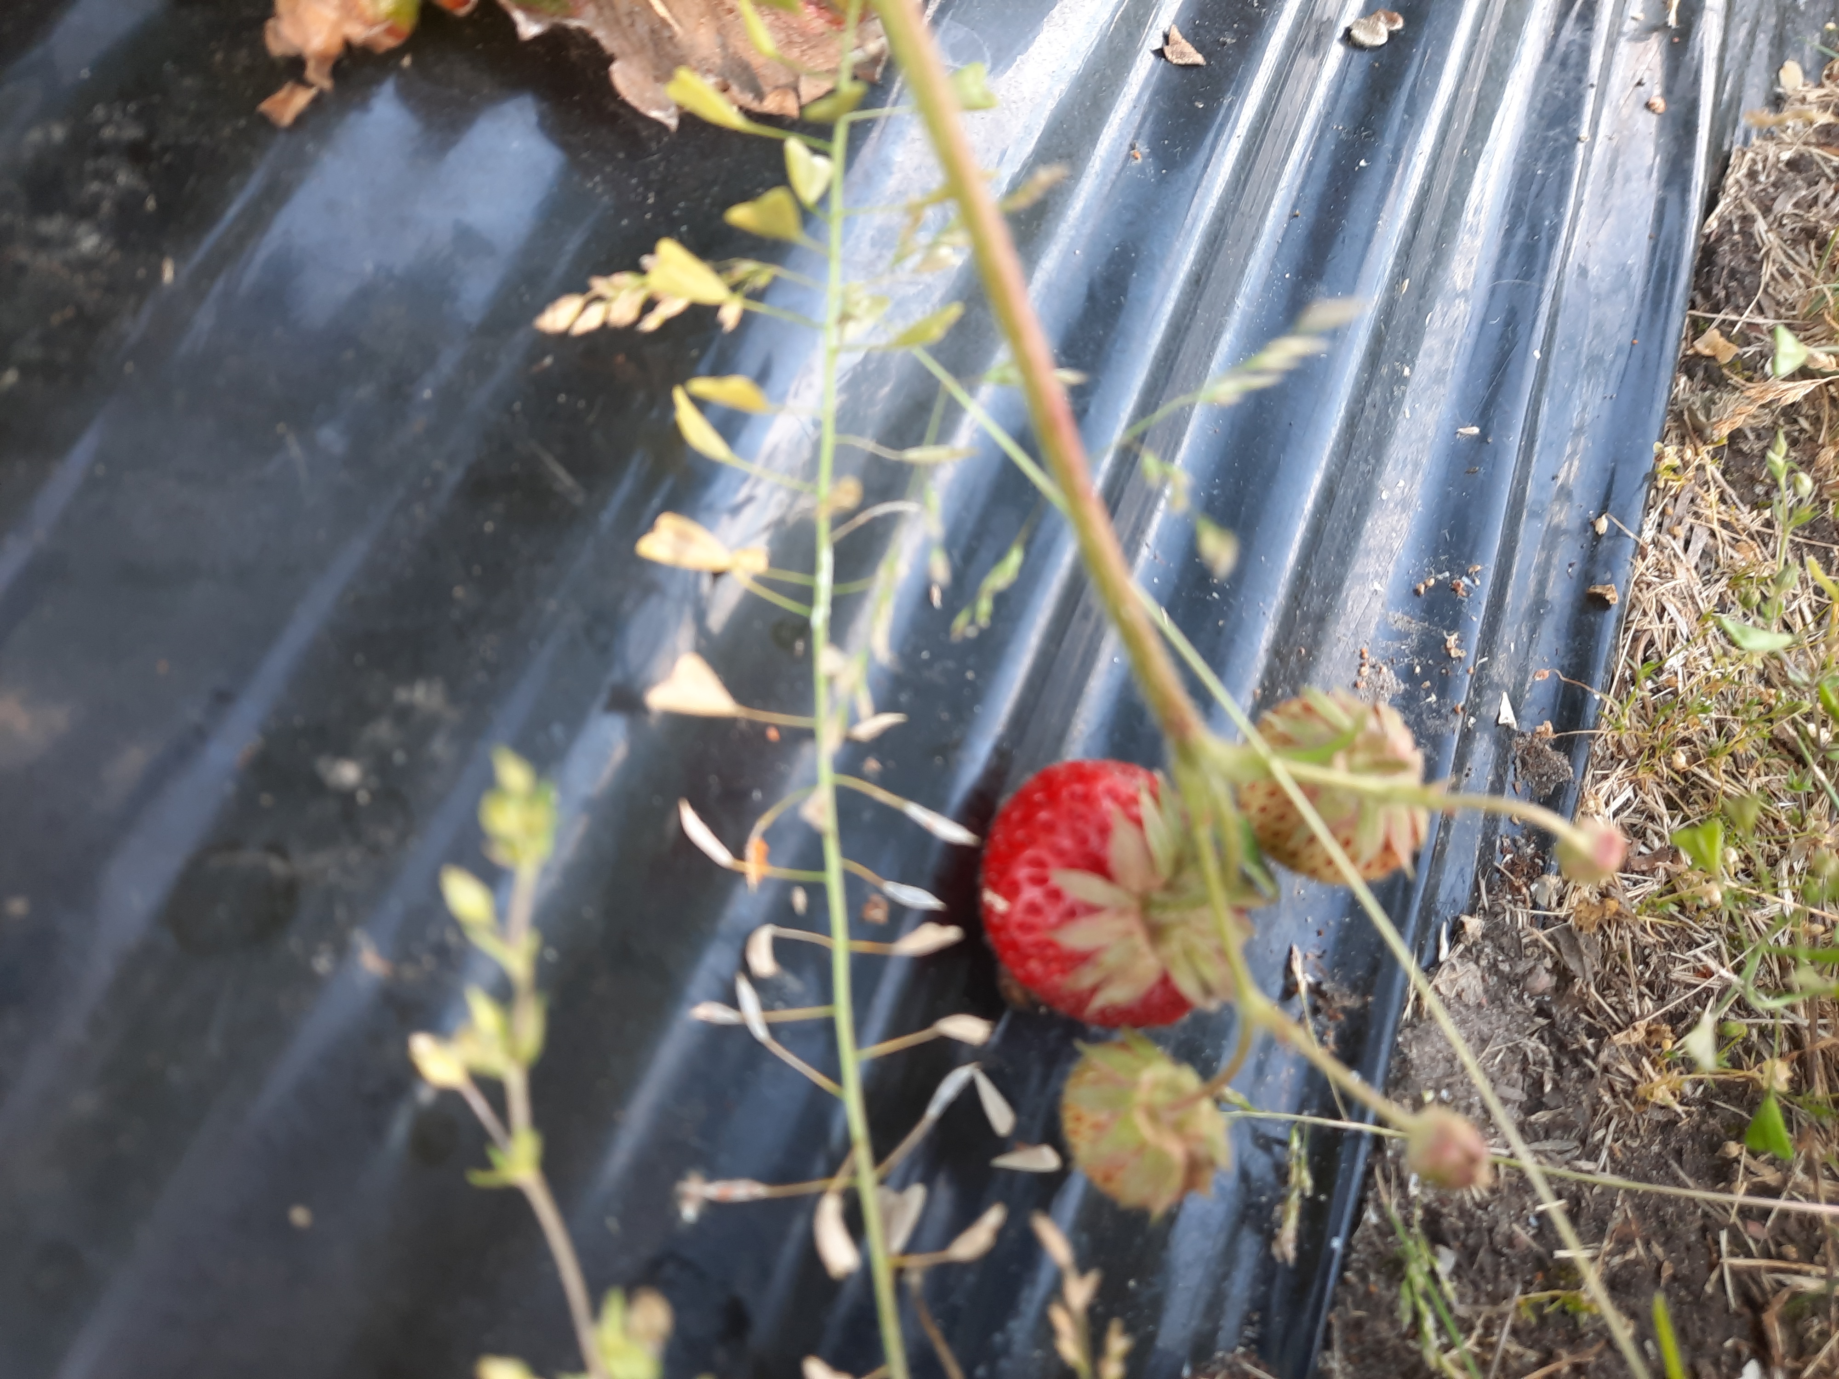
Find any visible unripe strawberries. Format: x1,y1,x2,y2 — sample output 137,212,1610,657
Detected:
1075,1050,1218,1218
1238,696,1431,881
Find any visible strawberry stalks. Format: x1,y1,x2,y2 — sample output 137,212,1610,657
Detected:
1118,827,1290,935
1142,1009,1276,1141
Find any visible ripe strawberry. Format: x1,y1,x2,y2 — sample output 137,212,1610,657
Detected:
980,761,1255,1016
